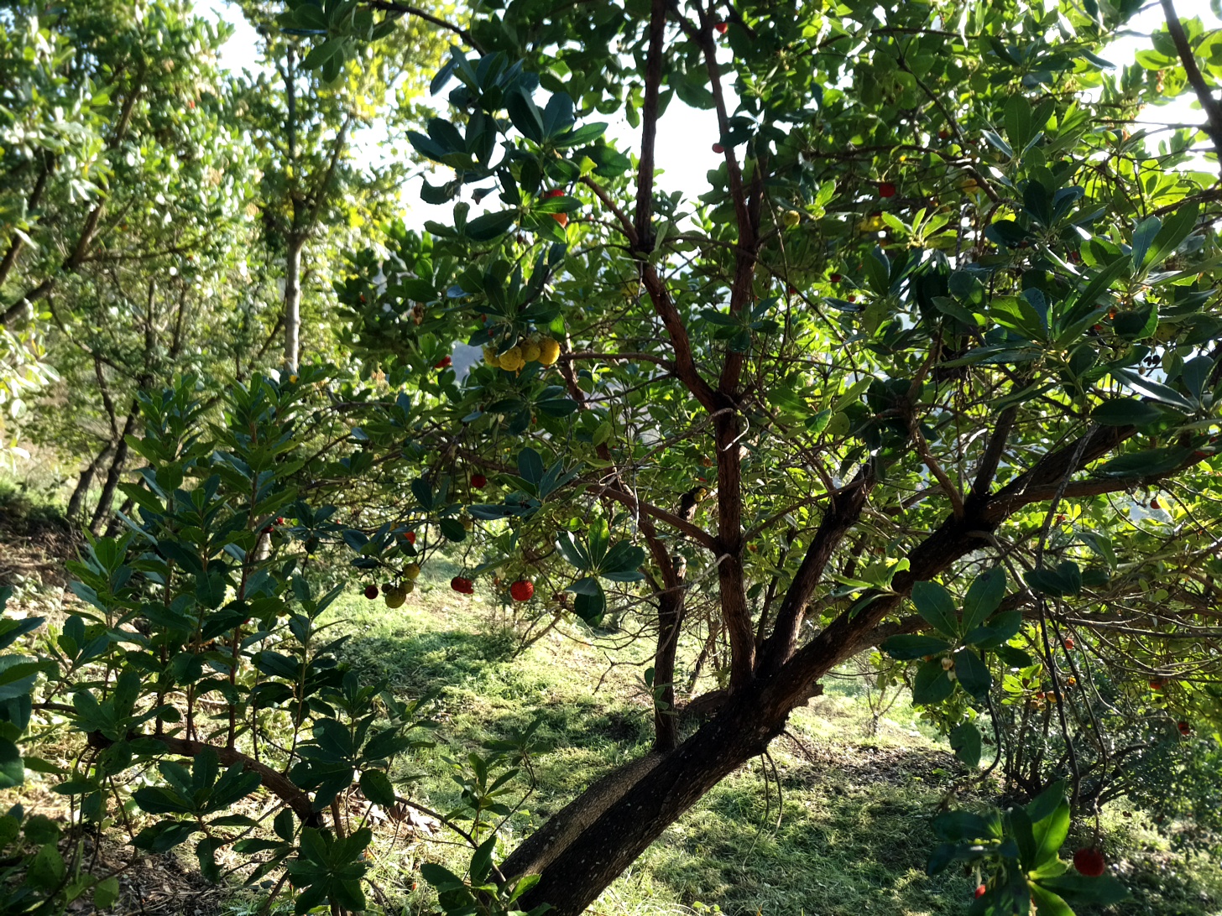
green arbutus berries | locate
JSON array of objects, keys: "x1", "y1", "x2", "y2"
[
  {"x1": 403, "y1": 563, "x2": 419, "y2": 579},
  {"x1": 961, "y1": 177, "x2": 979, "y2": 192},
  {"x1": 400, "y1": 581, "x2": 415, "y2": 594},
  {"x1": 1030, "y1": 700, "x2": 1038, "y2": 708},
  {"x1": 385, "y1": 588, "x2": 406, "y2": 608},
  {"x1": 781, "y1": 210, "x2": 800, "y2": 226},
  {"x1": 1039, "y1": 703, "x2": 1048, "y2": 711}
]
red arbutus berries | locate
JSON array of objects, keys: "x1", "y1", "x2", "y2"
[
  {"x1": 1150, "y1": 498, "x2": 1161, "y2": 510},
  {"x1": 511, "y1": 580, "x2": 534, "y2": 602},
  {"x1": 714, "y1": 21, "x2": 727, "y2": 33},
  {"x1": 848, "y1": 295, "x2": 856, "y2": 302},
  {"x1": 1074, "y1": 847, "x2": 1105, "y2": 878},
  {"x1": 1177, "y1": 720, "x2": 1187, "y2": 730},
  {"x1": 1149, "y1": 679, "x2": 1161, "y2": 689},
  {"x1": 460, "y1": 579, "x2": 474, "y2": 594},
  {"x1": 547, "y1": 187, "x2": 566, "y2": 199},
  {"x1": 366, "y1": 586, "x2": 379, "y2": 599},
  {"x1": 402, "y1": 531, "x2": 416, "y2": 544},
  {"x1": 879, "y1": 182, "x2": 897, "y2": 198},
  {"x1": 1036, "y1": 691, "x2": 1044, "y2": 698},
  {"x1": 789, "y1": 287, "x2": 796, "y2": 294},
  {"x1": 976, "y1": 884, "x2": 987, "y2": 898},
  {"x1": 831, "y1": 273, "x2": 841, "y2": 282},
  {"x1": 1064, "y1": 639, "x2": 1075, "y2": 650},
  {"x1": 471, "y1": 473, "x2": 486, "y2": 488},
  {"x1": 436, "y1": 357, "x2": 452, "y2": 370},
  {"x1": 450, "y1": 577, "x2": 464, "y2": 591}
]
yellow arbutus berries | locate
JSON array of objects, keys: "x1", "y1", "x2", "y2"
[
  {"x1": 699, "y1": 488, "x2": 707, "y2": 496},
  {"x1": 537, "y1": 339, "x2": 560, "y2": 366},
  {"x1": 500, "y1": 344, "x2": 523, "y2": 367},
  {"x1": 519, "y1": 339, "x2": 541, "y2": 360},
  {"x1": 484, "y1": 346, "x2": 502, "y2": 365},
  {"x1": 1047, "y1": 690, "x2": 1058, "y2": 703},
  {"x1": 694, "y1": 493, "x2": 703, "y2": 501},
  {"x1": 553, "y1": 210, "x2": 568, "y2": 226}
]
